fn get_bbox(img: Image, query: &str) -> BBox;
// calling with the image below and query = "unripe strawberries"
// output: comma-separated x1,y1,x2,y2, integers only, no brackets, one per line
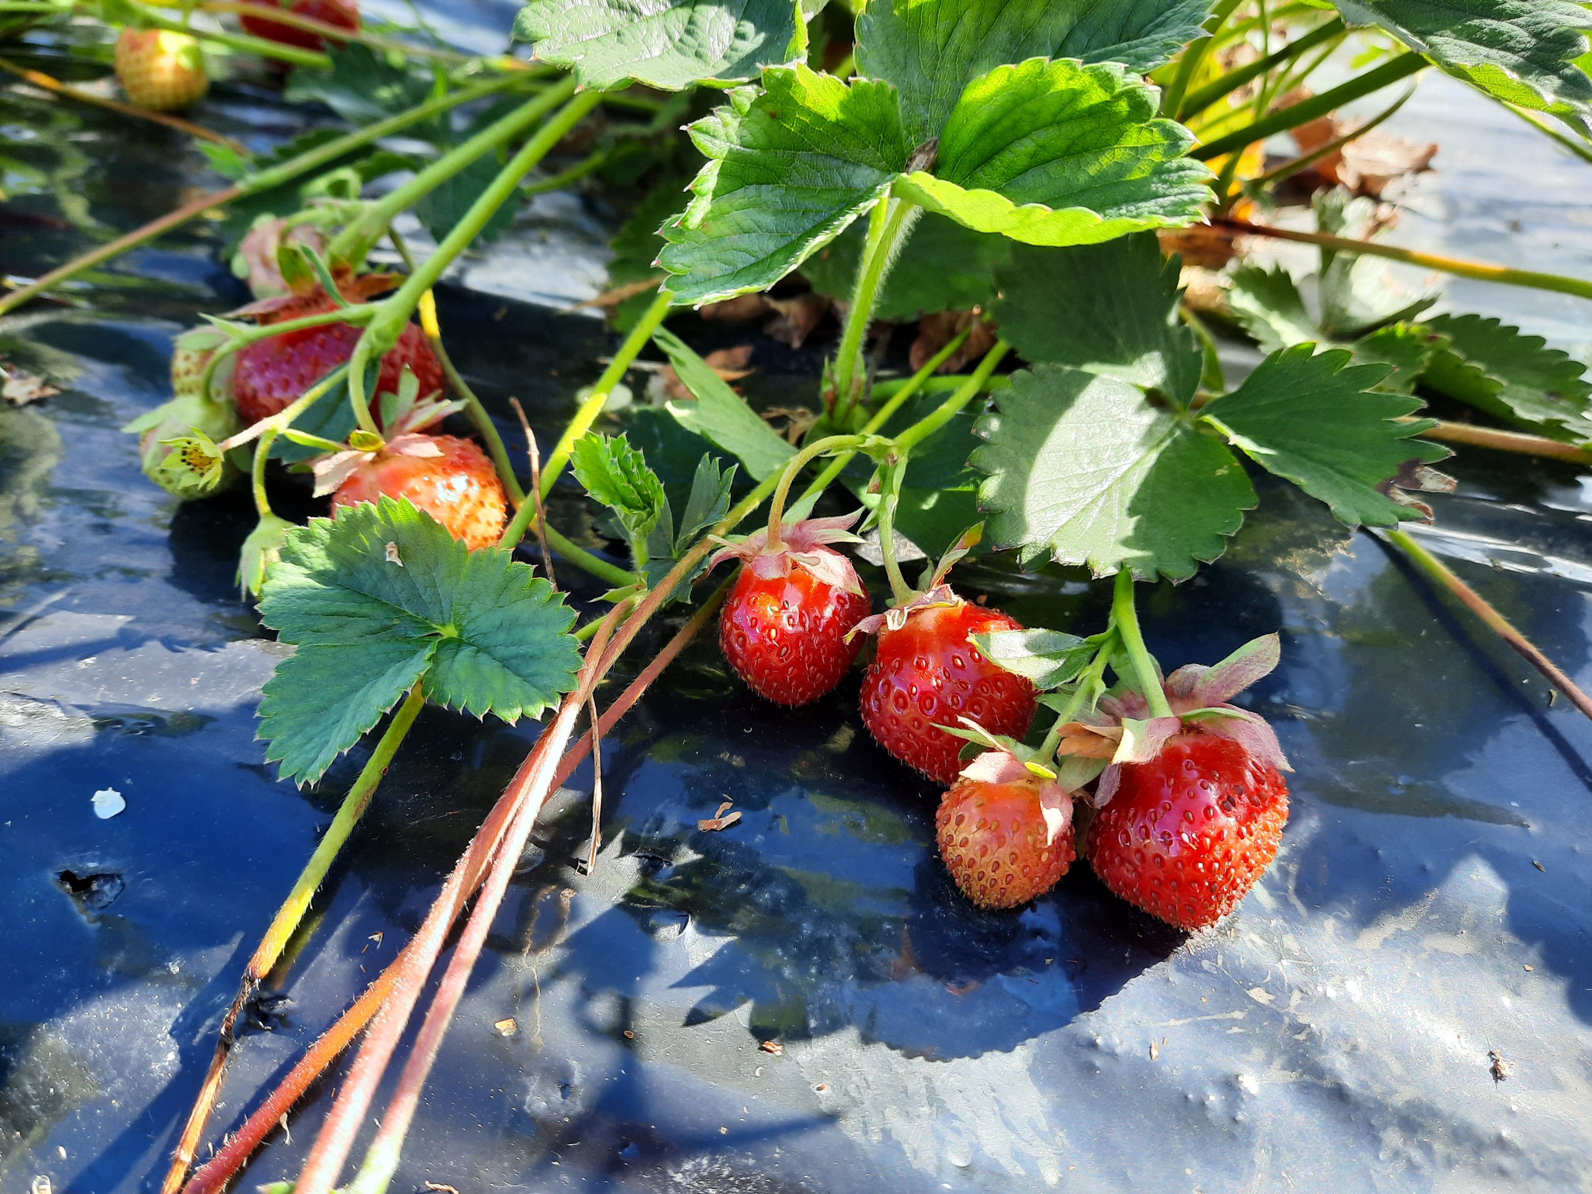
310,447,485,591
940,766,1088,899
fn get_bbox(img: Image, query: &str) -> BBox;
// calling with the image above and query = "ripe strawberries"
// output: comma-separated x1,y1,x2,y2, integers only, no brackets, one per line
718,538,861,694
875,626,1012,761
1092,719,1292,927
215,274,428,455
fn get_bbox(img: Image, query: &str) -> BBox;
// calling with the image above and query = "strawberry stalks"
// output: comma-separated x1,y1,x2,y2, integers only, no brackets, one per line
1116,569,1180,763
757,436,841,568
1024,617,1111,779
879,442,934,648
343,317,406,474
